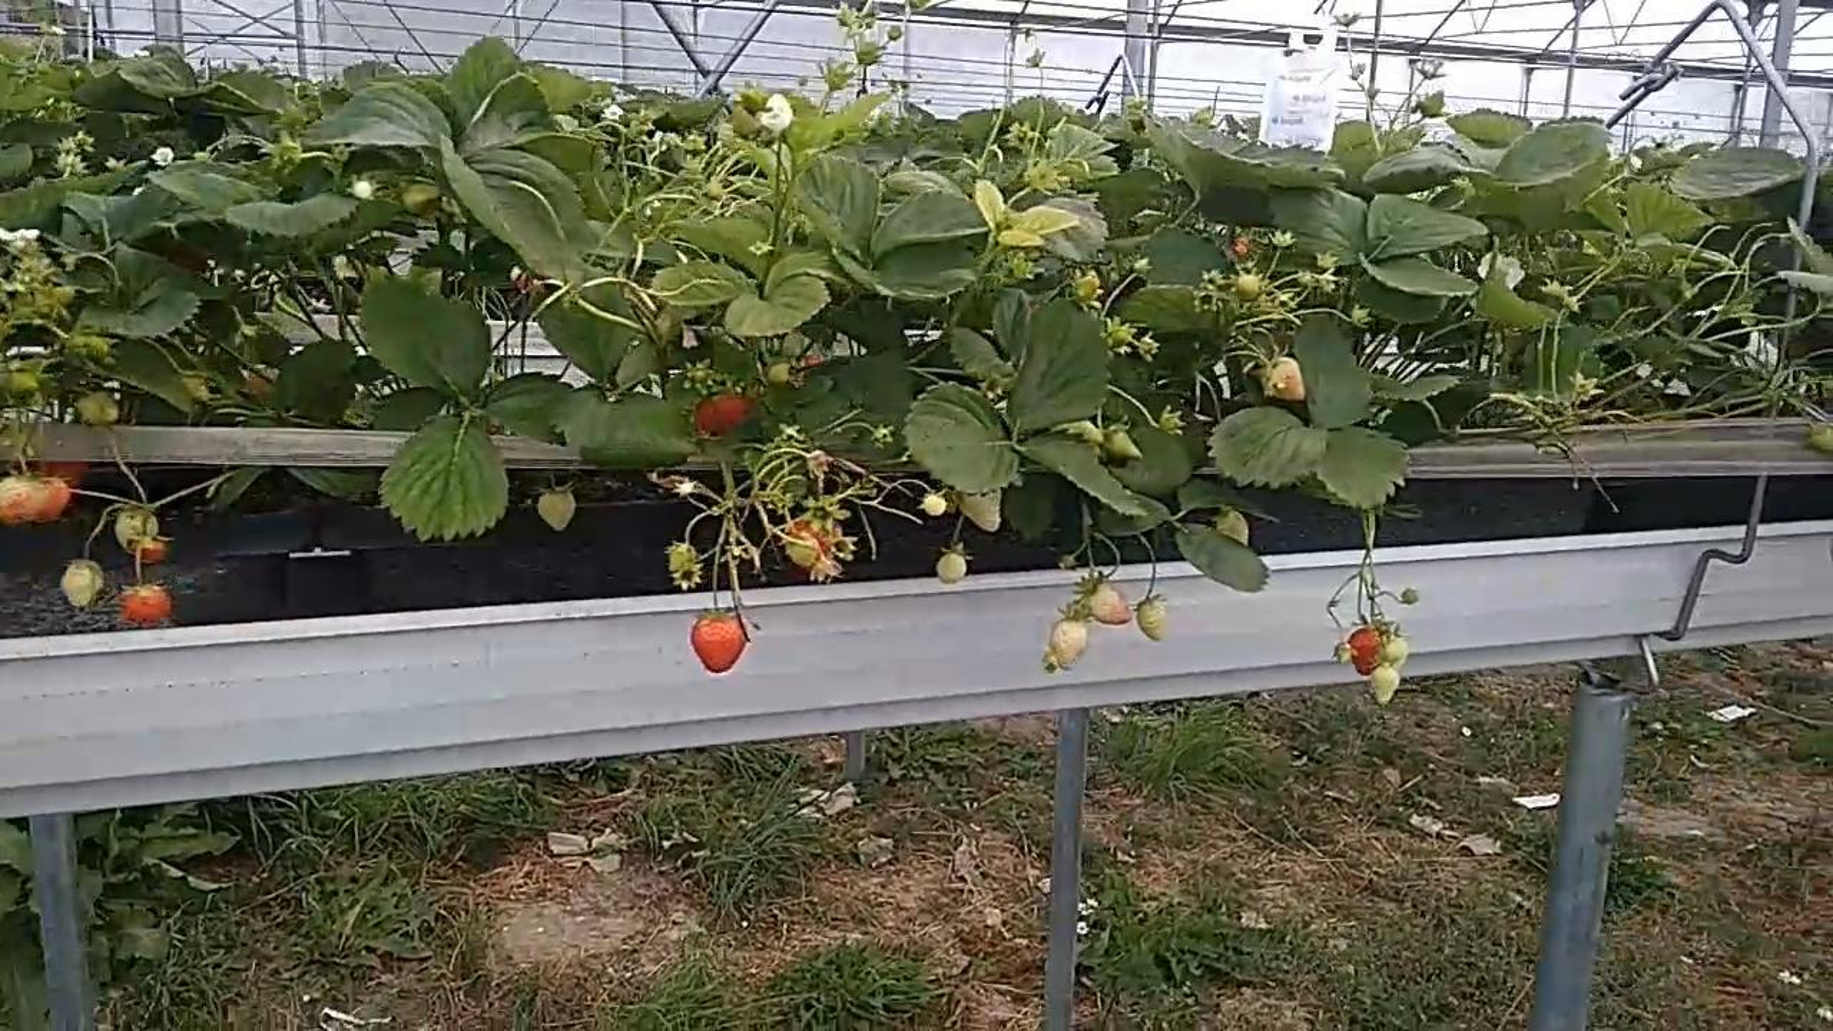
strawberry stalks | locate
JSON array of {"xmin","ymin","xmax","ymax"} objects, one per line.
[
  {"xmin": 705, "ymin": 548, "xmax": 731, "ymax": 628},
  {"xmin": 131, "ymin": 568, "xmax": 151, "ymax": 594},
  {"xmin": 1353, "ymin": 576, "xmax": 1375, "ymax": 636}
]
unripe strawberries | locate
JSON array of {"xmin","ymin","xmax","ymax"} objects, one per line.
[
  {"xmin": 1040, "ymin": 619, "xmax": 1086, "ymax": 672},
  {"xmin": 32, "ymin": 477, "xmax": 72, "ymax": 520},
  {"xmin": 1085, "ymin": 589, "xmax": 1125, "ymax": 629},
  {"xmin": 664, "ymin": 542, "xmax": 696, "ymax": 571},
  {"xmin": 1798, "ymin": 411, "xmax": 1831, "ymax": 465},
  {"xmin": 1385, "ymin": 637, "xmax": 1410, "ymax": 672},
  {"xmin": 60, "ymin": 561, "xmax": 100, "ymax": 609},
  {"xmin": 936, "ymin": 552, "xmax": 967, "ymax": 586},
  {"xmin": 1259, "ymin": 361, "xmax": 1312, "ymax": 401},
  {"xmin": 677, "ymin": 384, "xmax": 763, "ymax": 446},
  {"xmin": 1371, "ymin": 666, "xmax": 1397, "ymax": 706},
  {"xmin": 533, "ymin": 490, "xmax": 584, "ymax": 530},
  {"xmin": 1219, "ymin": 510, "xmax": 1252, "ymax": 543},
  {"xmin": 1098, "ymin": 429, "xmax": 1148, "ymax": 470},
  {"xmin": 1222, "ymin": 270, "xmax": 1269, "ymax": 311},
  {"xmin": 77, "ymin": 389, "xmax": 126, "ymax": 419},
  {"xmin": 1137, "ymin": 595, "xmax": 1170, "ymax": 642},
  {"xmin": 783, "ymin": 534, "xmax": 817, "ymax": 568},
  {"xmin": 0, "ymin": 478, "xmax": 30, "ymax": 529},
  {"xmin": 924, "ymin": 497, "xmax": 949, "ymax": 521}
]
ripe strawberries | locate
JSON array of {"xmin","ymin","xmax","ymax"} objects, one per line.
[
  {"xmin": 1353, "ymin": 628, "xmax": 1389, "ymax": 677},
  {"xmin": 123, "ymin": 590, "xmax": 175, "ymax": 626},
  {"xmin": 134, "ymin": 531, "xmax": 168, "ymax": 560},
  {"xmin": 695, "ymin": 612, "xmax": 746, "ymax": 668}
]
